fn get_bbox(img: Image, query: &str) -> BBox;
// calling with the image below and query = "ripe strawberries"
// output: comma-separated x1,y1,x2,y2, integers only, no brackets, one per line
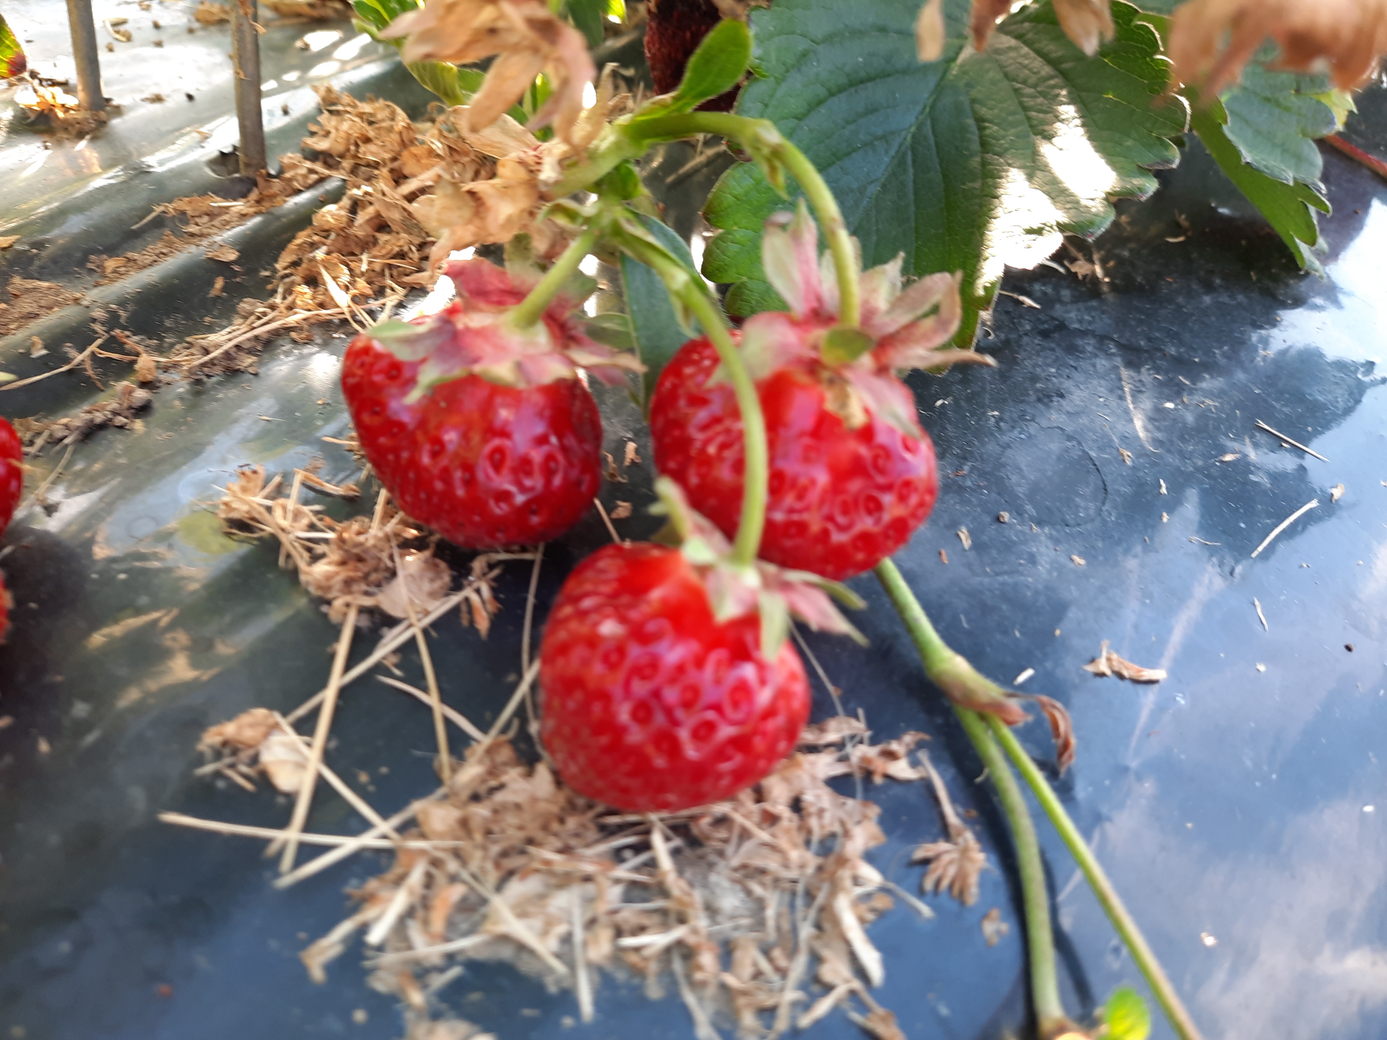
342,326,595,546
655,342,934,553
530,575,807,806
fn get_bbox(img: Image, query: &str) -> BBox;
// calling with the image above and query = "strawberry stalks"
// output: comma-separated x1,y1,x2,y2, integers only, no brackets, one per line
814,178,857,425
469,224,622,359
688,351,774,655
